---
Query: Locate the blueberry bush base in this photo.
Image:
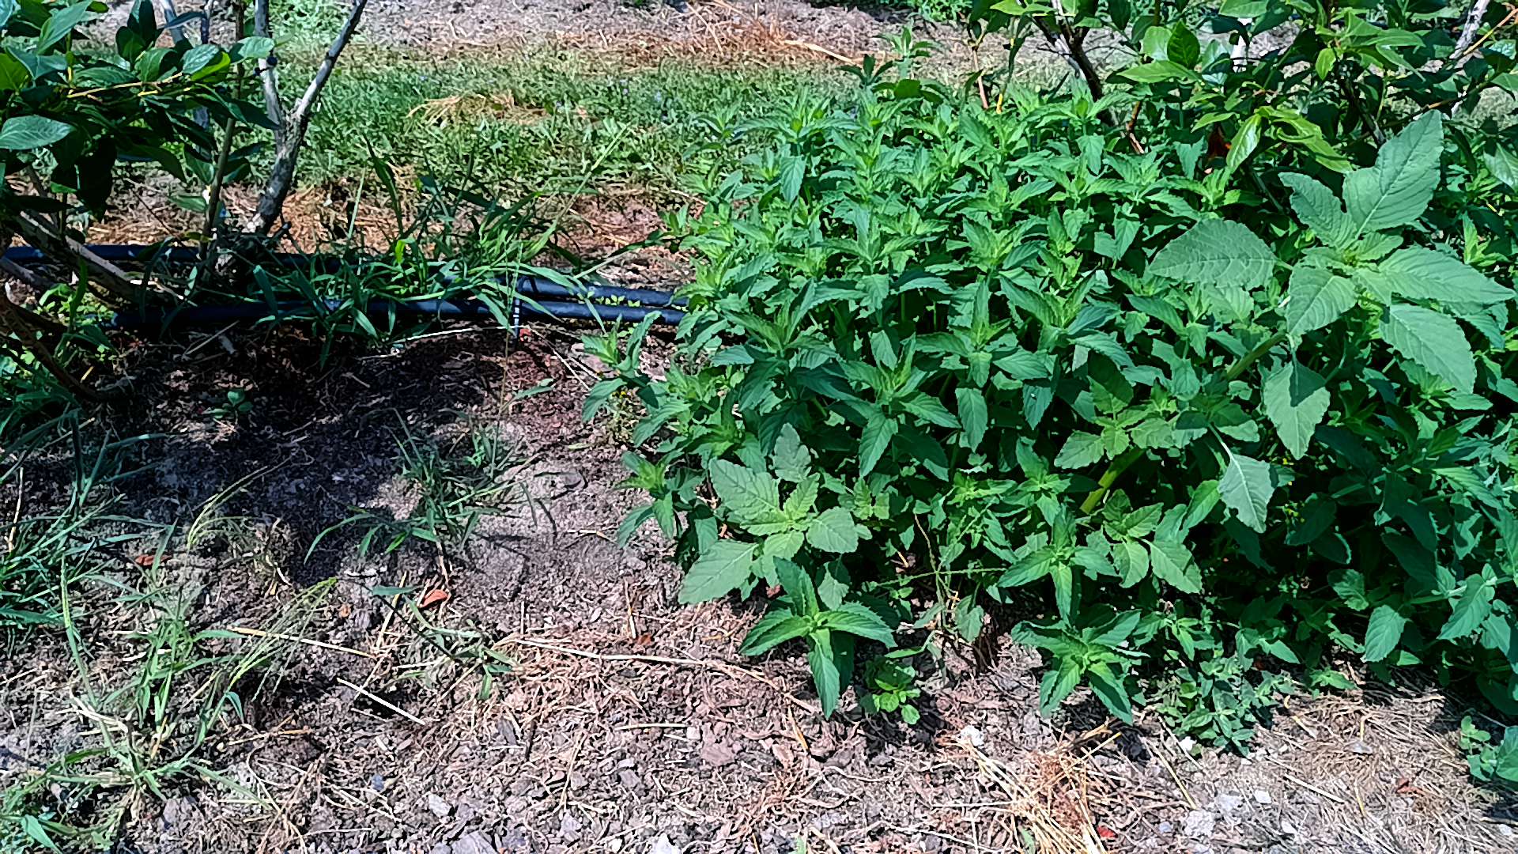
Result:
[51,80,354,431]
